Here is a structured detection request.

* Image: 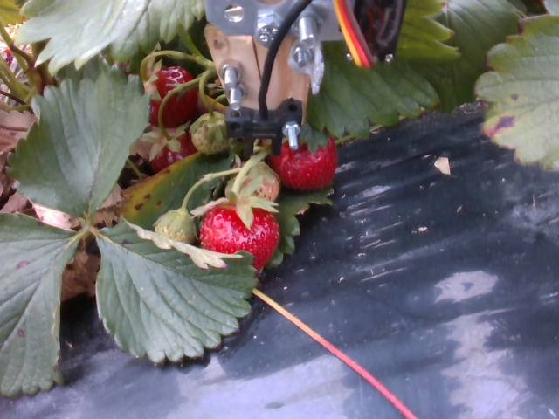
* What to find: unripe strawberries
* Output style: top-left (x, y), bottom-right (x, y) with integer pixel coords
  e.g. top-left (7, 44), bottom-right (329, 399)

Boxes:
top-left (157, 207), bottom-right (192, 251)
top-left (195, 109), bottom-right (233, 153)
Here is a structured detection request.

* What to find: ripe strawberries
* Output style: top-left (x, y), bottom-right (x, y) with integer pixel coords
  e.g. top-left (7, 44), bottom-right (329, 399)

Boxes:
top-left (143, 58), bottom-right (199, 121)
top-left (200, 195), bottom-right (279, 278)
top-left (142, 126), bottom-right (201, 181)
top-left (275, 128), bottom-right (351, 195)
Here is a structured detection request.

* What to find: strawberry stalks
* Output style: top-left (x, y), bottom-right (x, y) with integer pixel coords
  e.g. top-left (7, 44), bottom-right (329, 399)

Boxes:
top-left (219, 142), bottom-right (275, 215)
top-left (152, 92), bottom-right (177, 145)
